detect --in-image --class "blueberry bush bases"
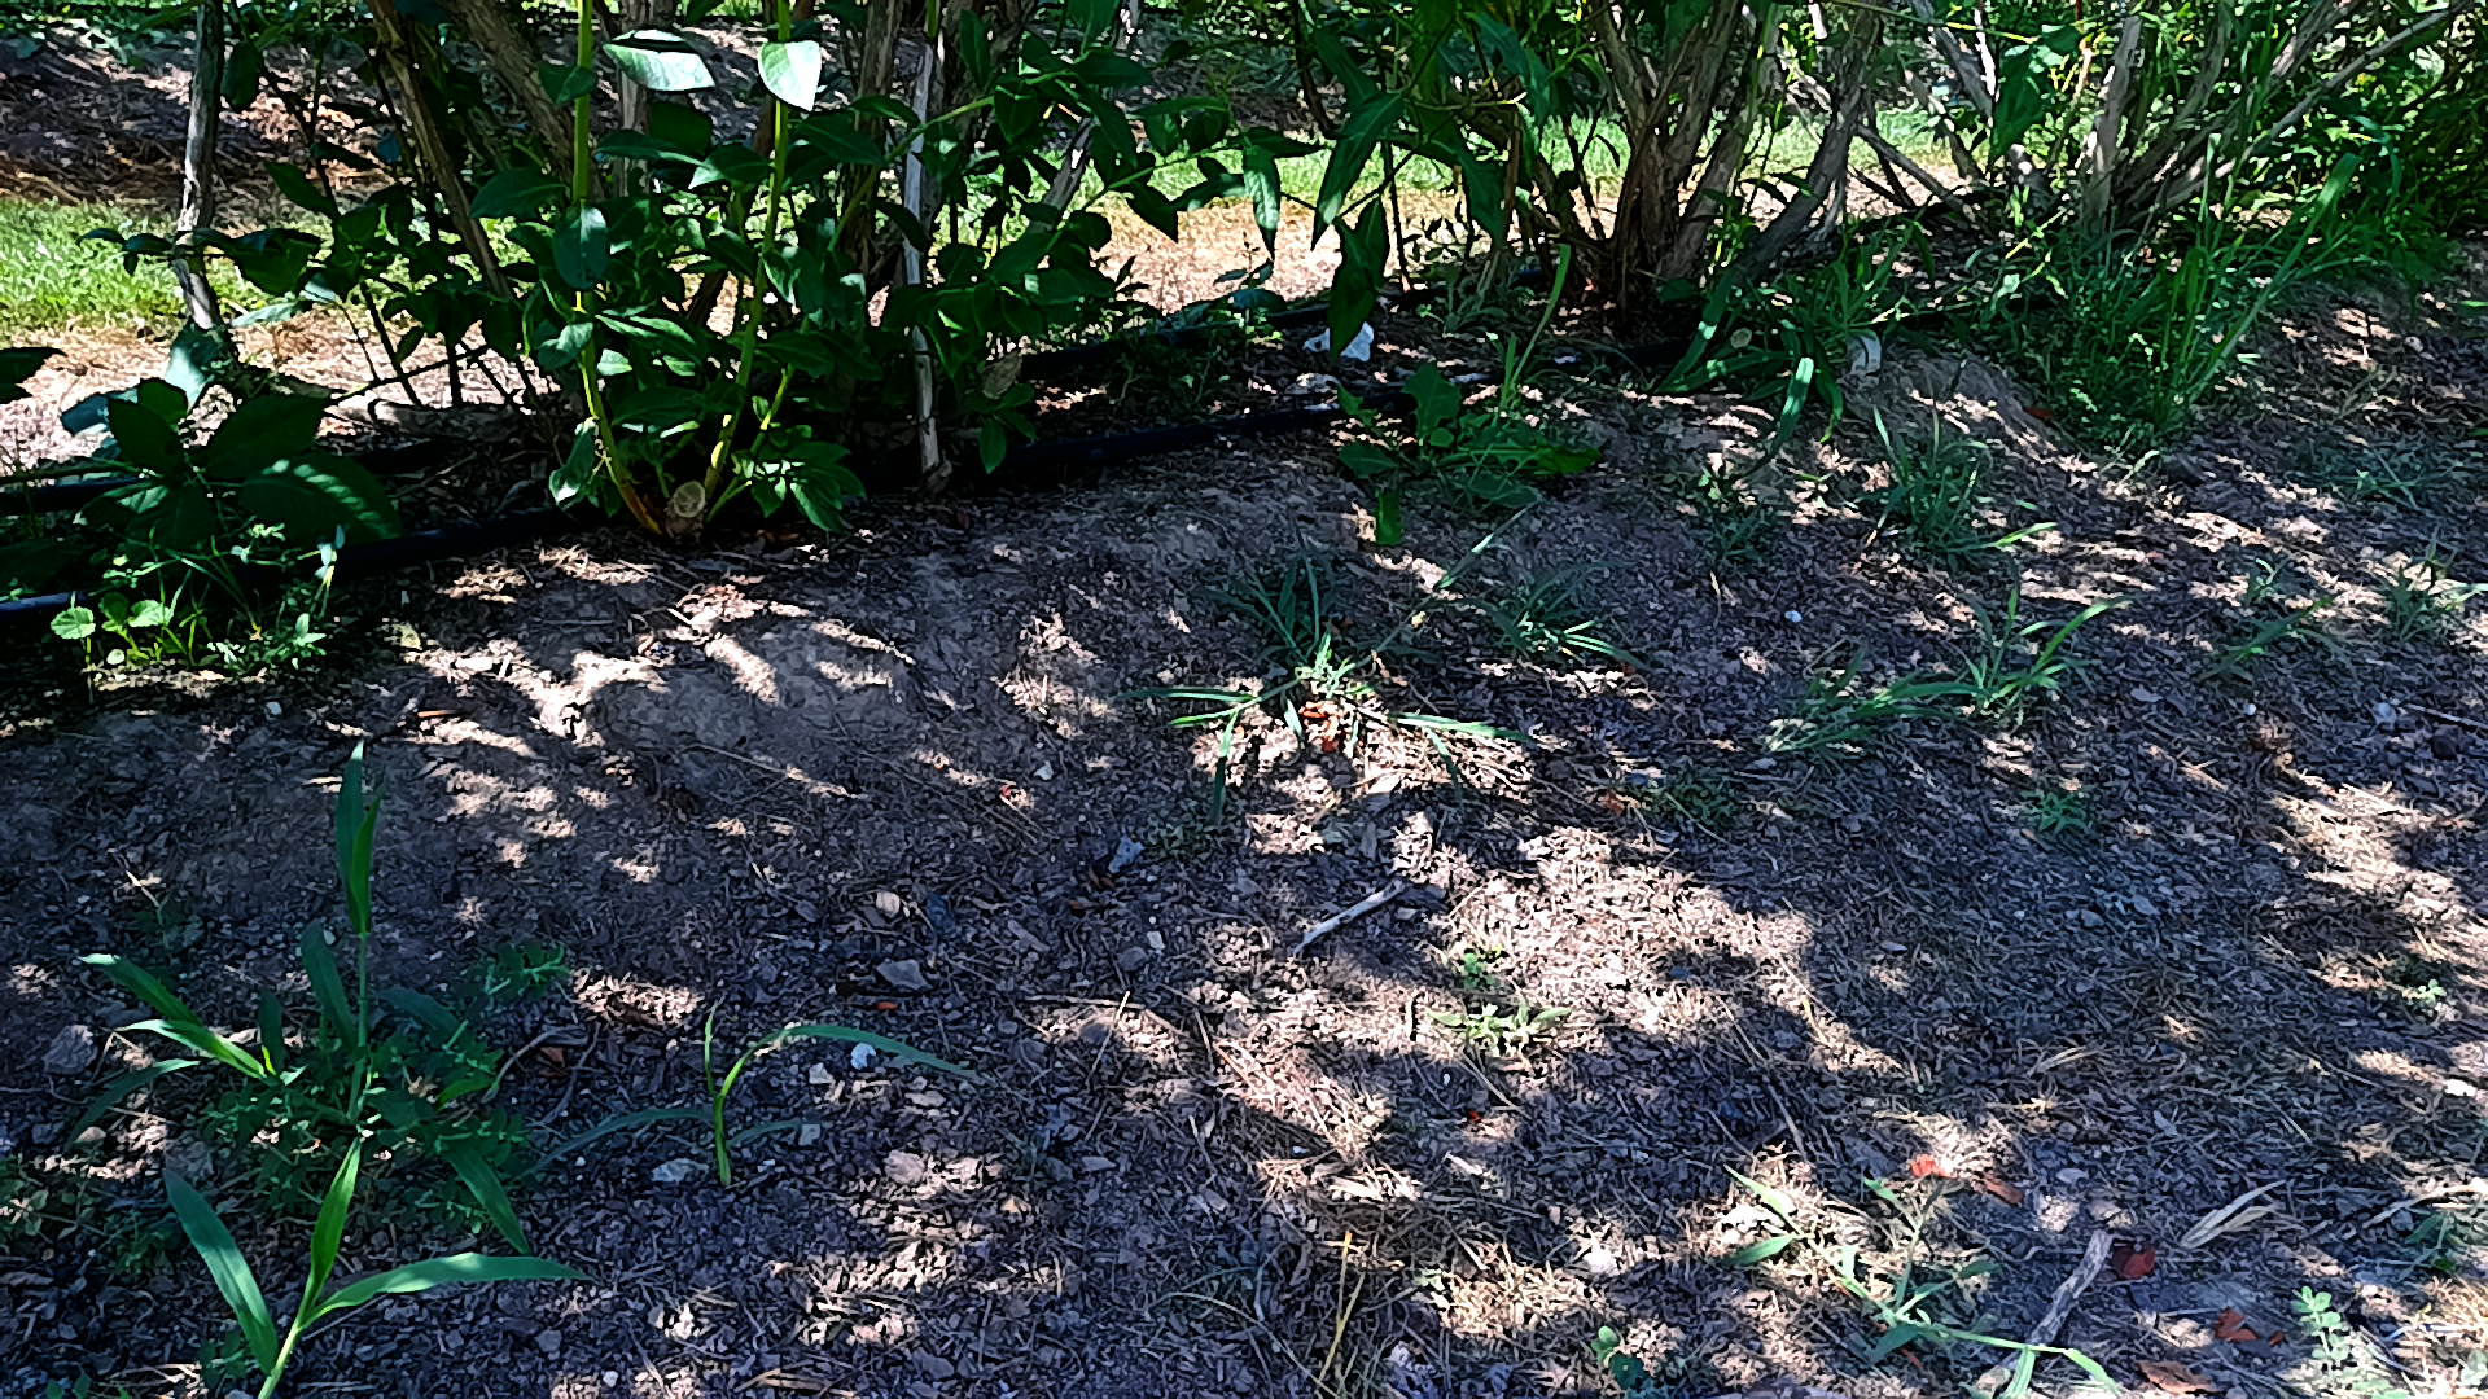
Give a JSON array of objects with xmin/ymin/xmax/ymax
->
[
  {"xmin": 1923, "ymin": 41, "xmax": 2332, "ymax": 412},
  {"xmin": 309, "ymin": 87, "xmax": 1142, "ymax": 705},
  {"xmin": 1356, "ymin": 71, "xmax": 1901, "ymax": 536}
]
